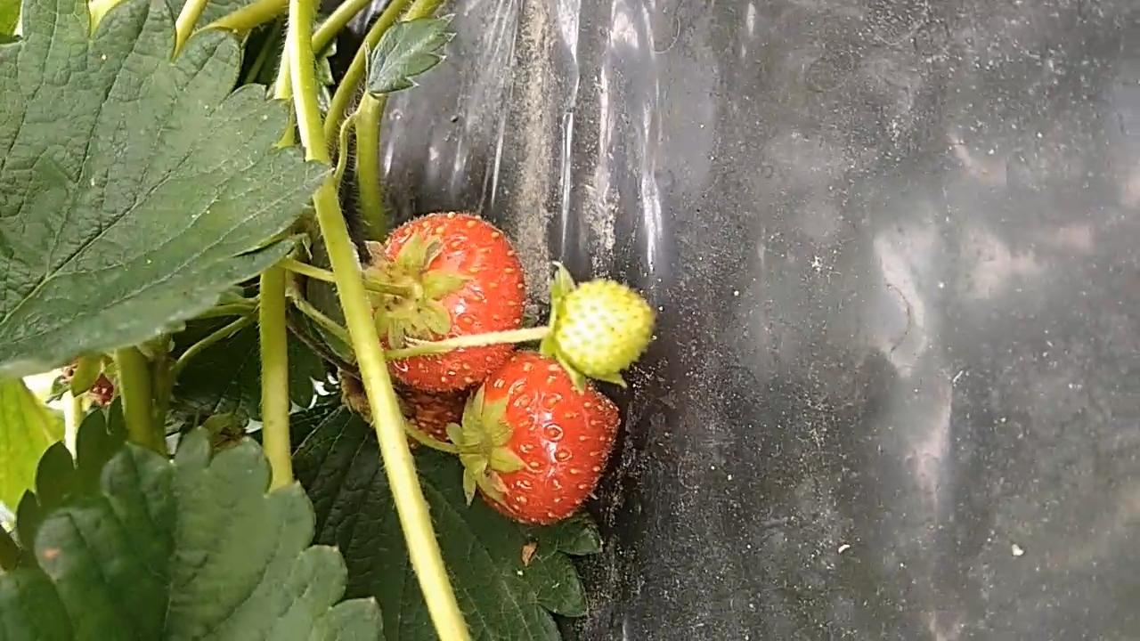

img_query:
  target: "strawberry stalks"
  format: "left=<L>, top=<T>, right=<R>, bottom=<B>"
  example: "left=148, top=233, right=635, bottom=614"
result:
left=480, top=314, right=575, bottom=355
left=282, top=252, right=445, bottom=316
left=409, top=408, right=539, bottom=467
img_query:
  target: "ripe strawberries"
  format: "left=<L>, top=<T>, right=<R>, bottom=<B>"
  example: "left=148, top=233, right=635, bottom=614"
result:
left=345, top=215, right=529, bottom=389
left=446, top=353, right=640, bottom=528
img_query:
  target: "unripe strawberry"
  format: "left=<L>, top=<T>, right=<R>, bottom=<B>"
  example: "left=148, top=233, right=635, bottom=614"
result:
left=554, top=276, right=661, bottom=377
